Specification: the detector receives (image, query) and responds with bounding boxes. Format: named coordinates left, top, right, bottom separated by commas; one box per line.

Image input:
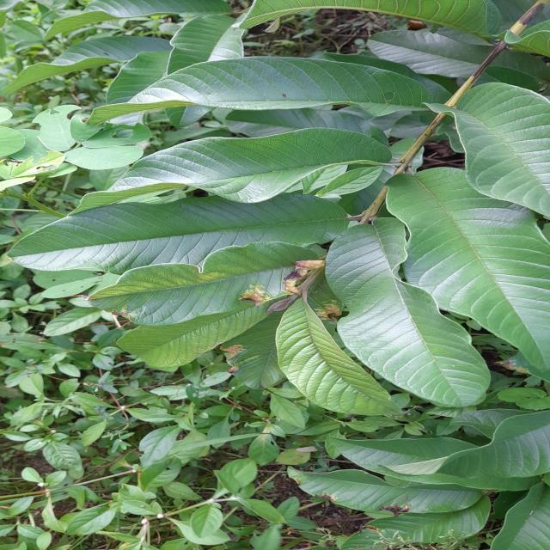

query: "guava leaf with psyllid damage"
left=76, top=227, right=329, bottom=327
